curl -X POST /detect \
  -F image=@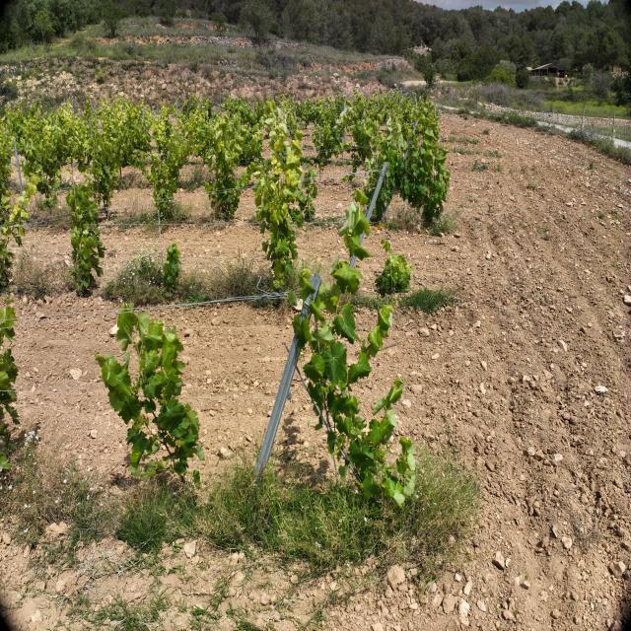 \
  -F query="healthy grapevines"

[280,215,418,514]
[92,299,211,508]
